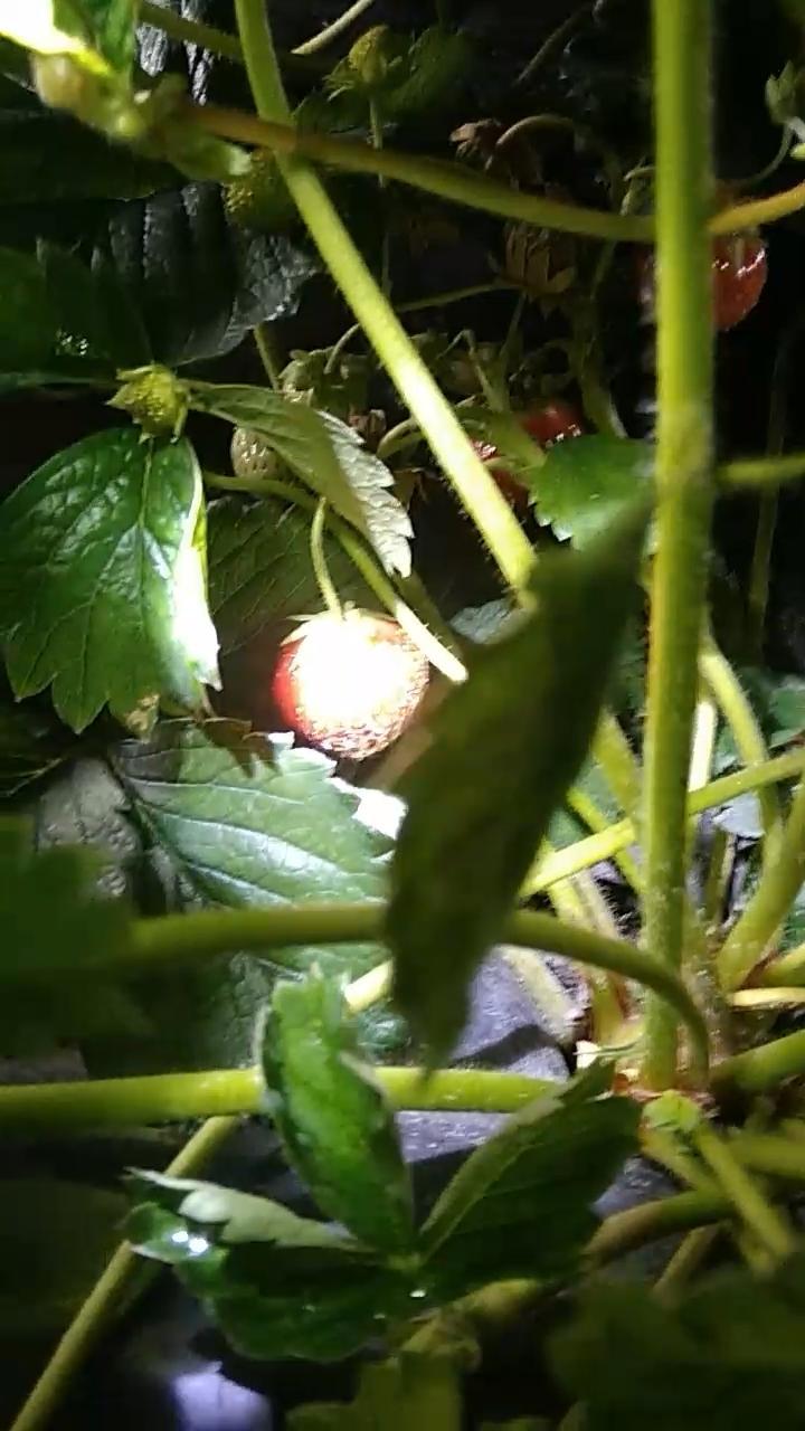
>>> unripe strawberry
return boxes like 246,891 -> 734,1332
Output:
240,397 -> 354,508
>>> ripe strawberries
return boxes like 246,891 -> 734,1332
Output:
438,371 -> 615,555
277,615 -> 432,754
626,201 -> 774,349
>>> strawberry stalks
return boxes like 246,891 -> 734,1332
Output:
296,486 -> 351,641
167,375 -> 253,419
